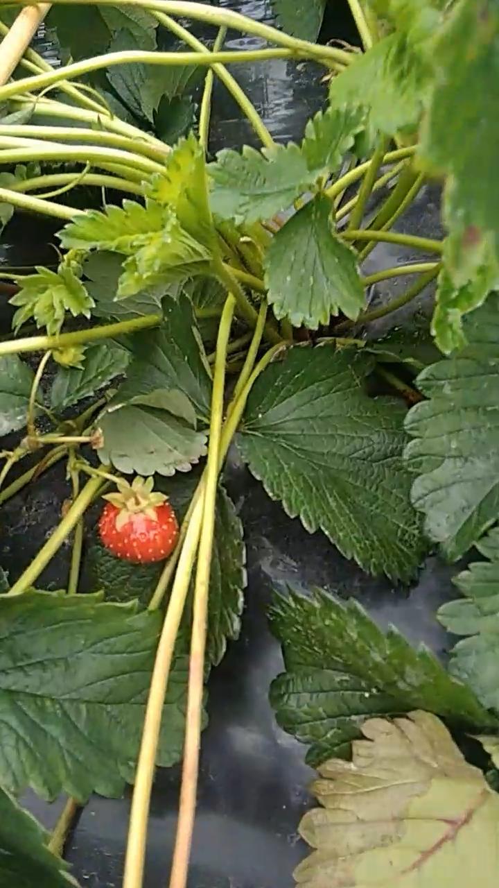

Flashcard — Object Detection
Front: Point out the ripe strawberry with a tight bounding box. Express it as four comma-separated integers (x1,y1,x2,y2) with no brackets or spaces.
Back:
96,491,186,567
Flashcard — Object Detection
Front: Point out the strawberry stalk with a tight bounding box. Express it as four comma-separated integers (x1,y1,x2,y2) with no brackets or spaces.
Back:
62,459,148,512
